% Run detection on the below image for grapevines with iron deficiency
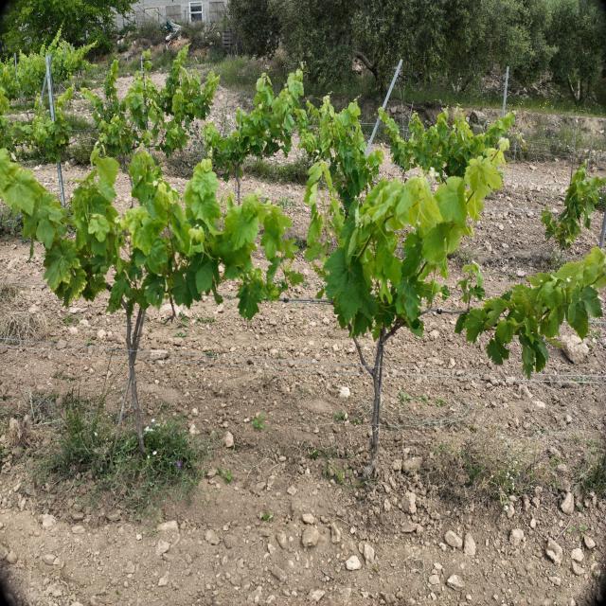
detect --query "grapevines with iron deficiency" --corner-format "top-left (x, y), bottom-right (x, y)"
top-left (286, 135), bottom-right (524, 481)
top-left (1, 137), bottom-right (297, 476)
